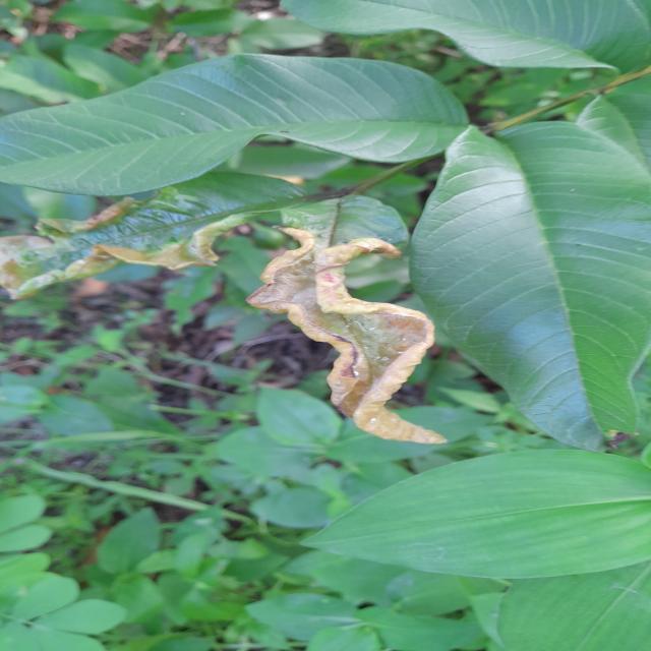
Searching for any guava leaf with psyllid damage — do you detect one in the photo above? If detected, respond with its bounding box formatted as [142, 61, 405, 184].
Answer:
[238, 189, 460, 449]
